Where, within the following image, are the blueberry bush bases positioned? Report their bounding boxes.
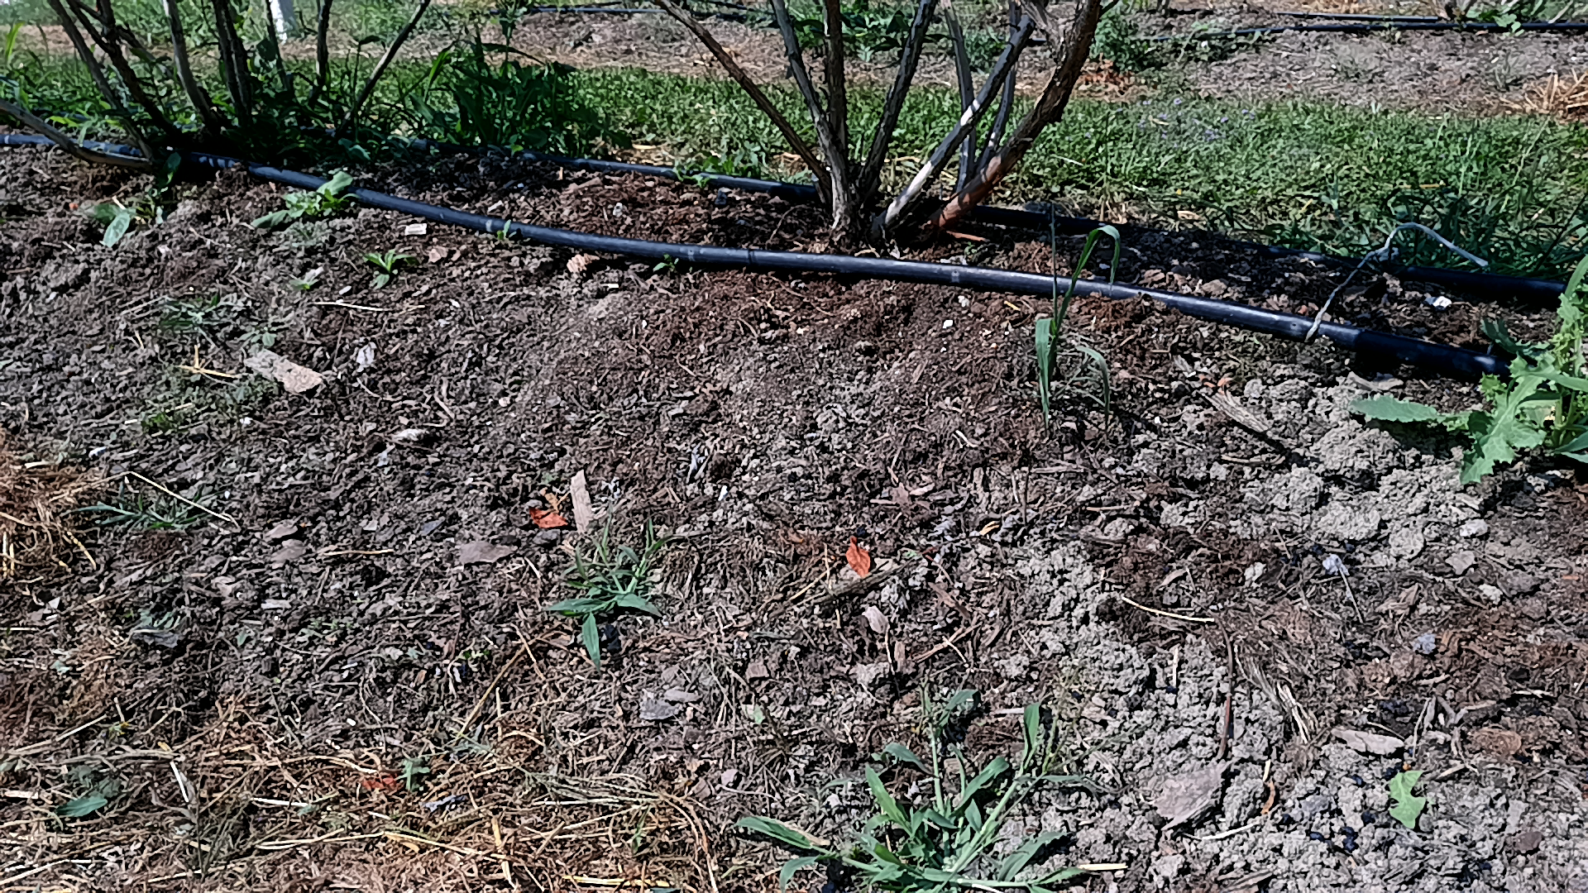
[88,52,412,224]
[758,94,1090,291]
